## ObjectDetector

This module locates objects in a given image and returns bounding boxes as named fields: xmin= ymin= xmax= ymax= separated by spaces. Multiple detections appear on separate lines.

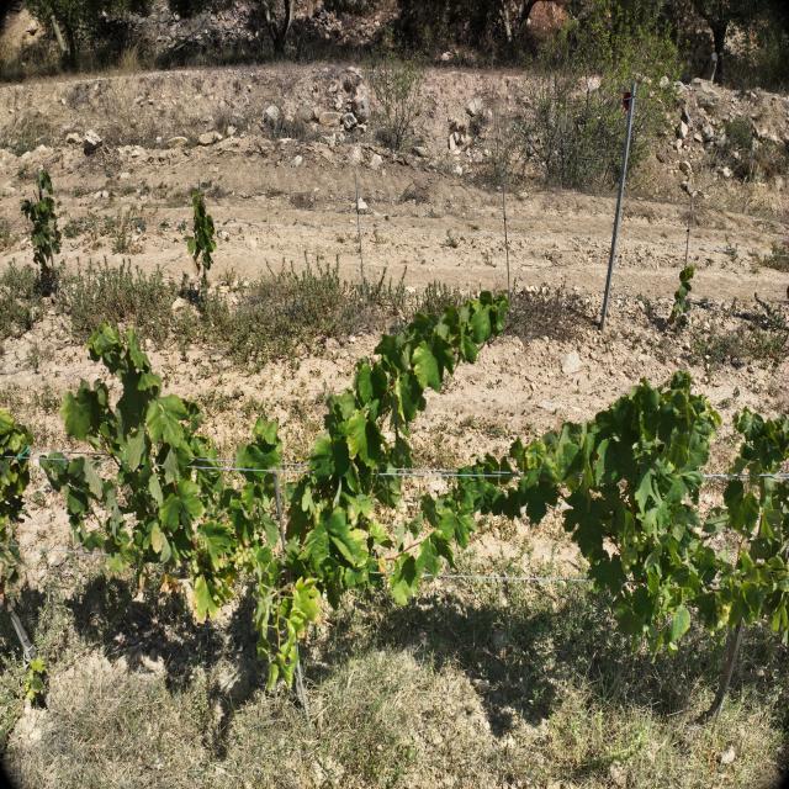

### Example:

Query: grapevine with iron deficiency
xmin=54 ymin=312 xmax=472 ymax=704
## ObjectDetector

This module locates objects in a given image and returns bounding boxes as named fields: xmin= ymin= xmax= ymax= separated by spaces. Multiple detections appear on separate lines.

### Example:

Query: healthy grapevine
xmin=418 ymin=380 xmax=789 ymax=732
